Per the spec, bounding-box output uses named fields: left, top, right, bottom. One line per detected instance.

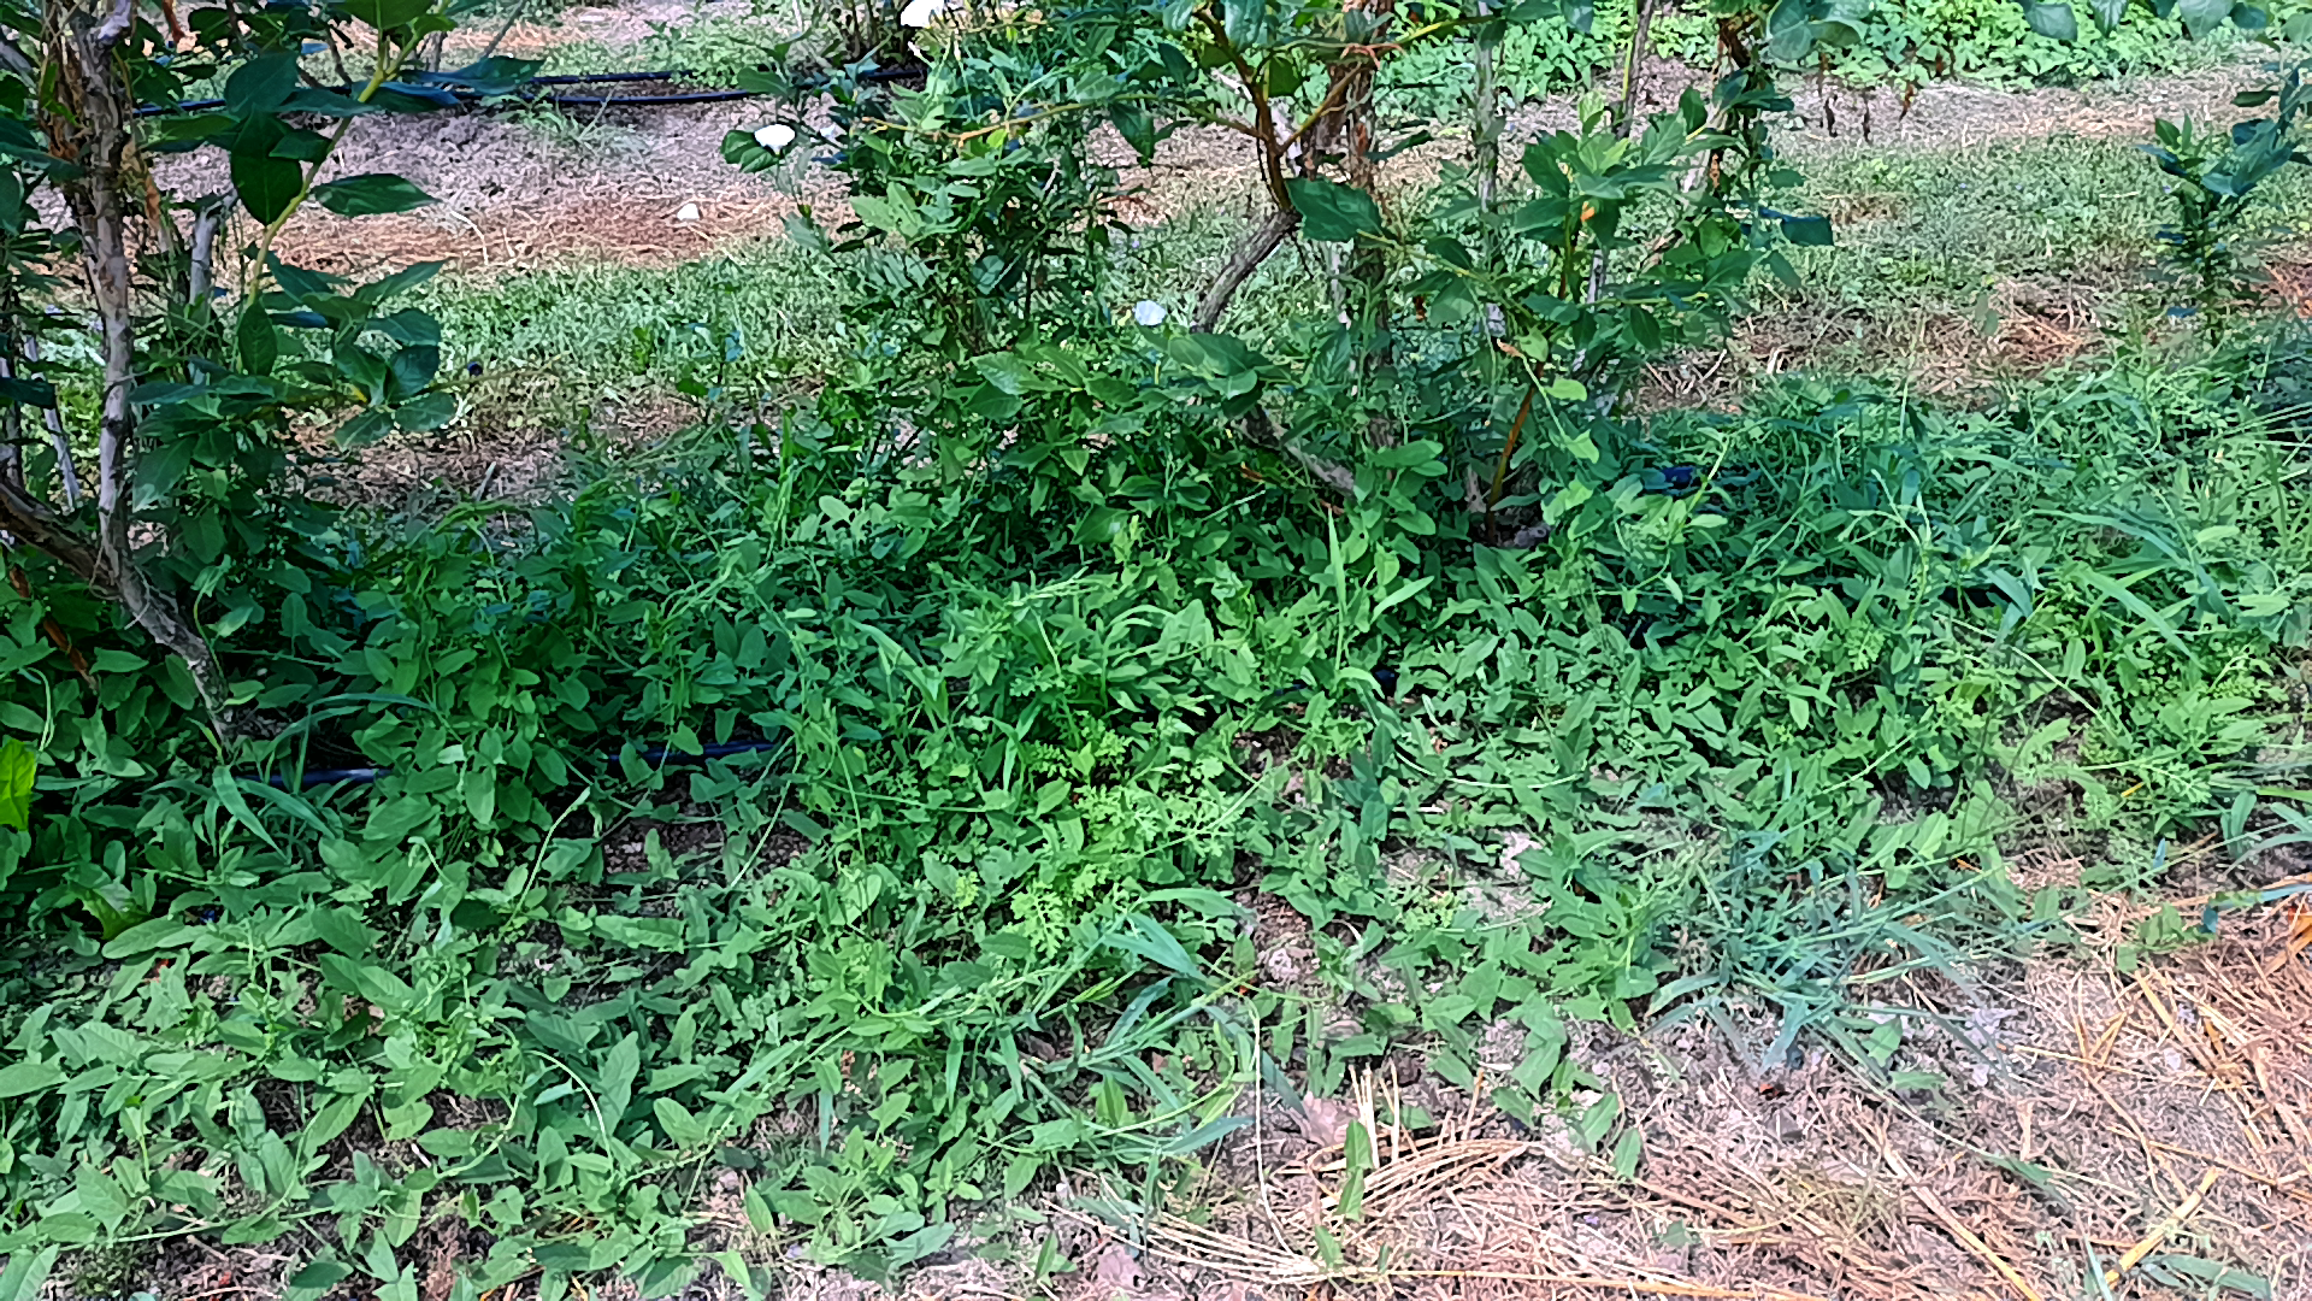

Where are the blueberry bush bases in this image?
left=0, top=332, right=472, bottom=900
left=1158, top=237, right=1712, bottom=677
